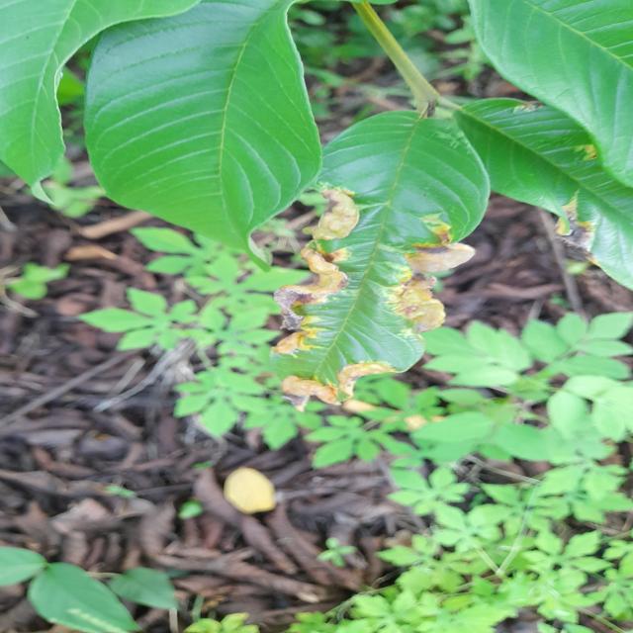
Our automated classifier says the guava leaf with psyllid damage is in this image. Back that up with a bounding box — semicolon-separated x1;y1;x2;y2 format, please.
272;103;508;435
